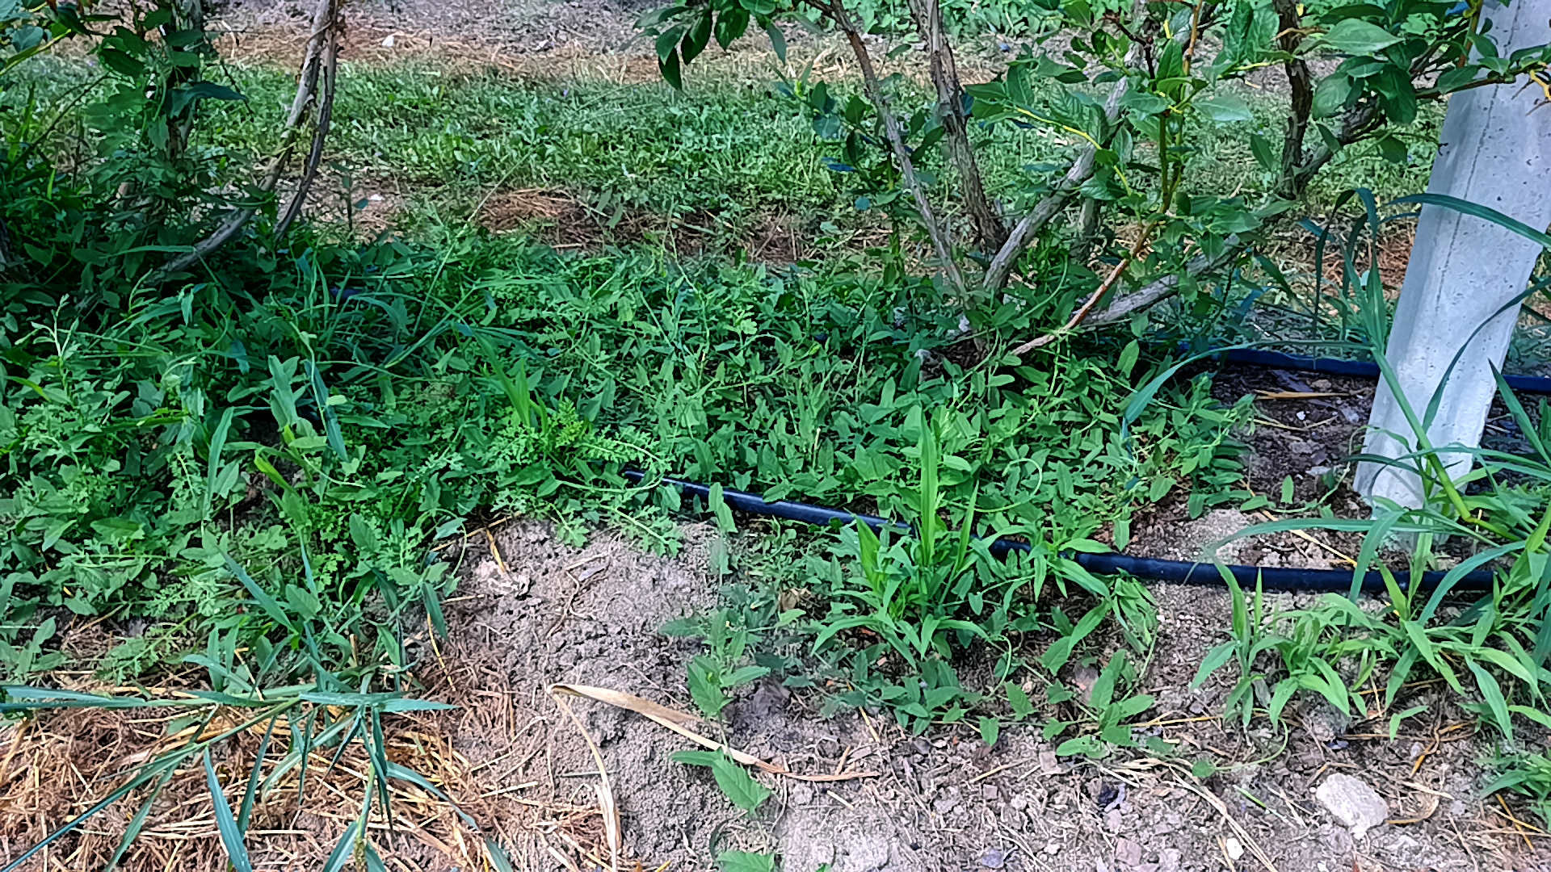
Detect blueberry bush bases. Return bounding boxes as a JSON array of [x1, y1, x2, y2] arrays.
[[25, 78, 358, 416], [855, 162, 1183, 442]]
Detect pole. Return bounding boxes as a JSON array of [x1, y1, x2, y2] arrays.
[[1343, 19, 1551, 580]]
